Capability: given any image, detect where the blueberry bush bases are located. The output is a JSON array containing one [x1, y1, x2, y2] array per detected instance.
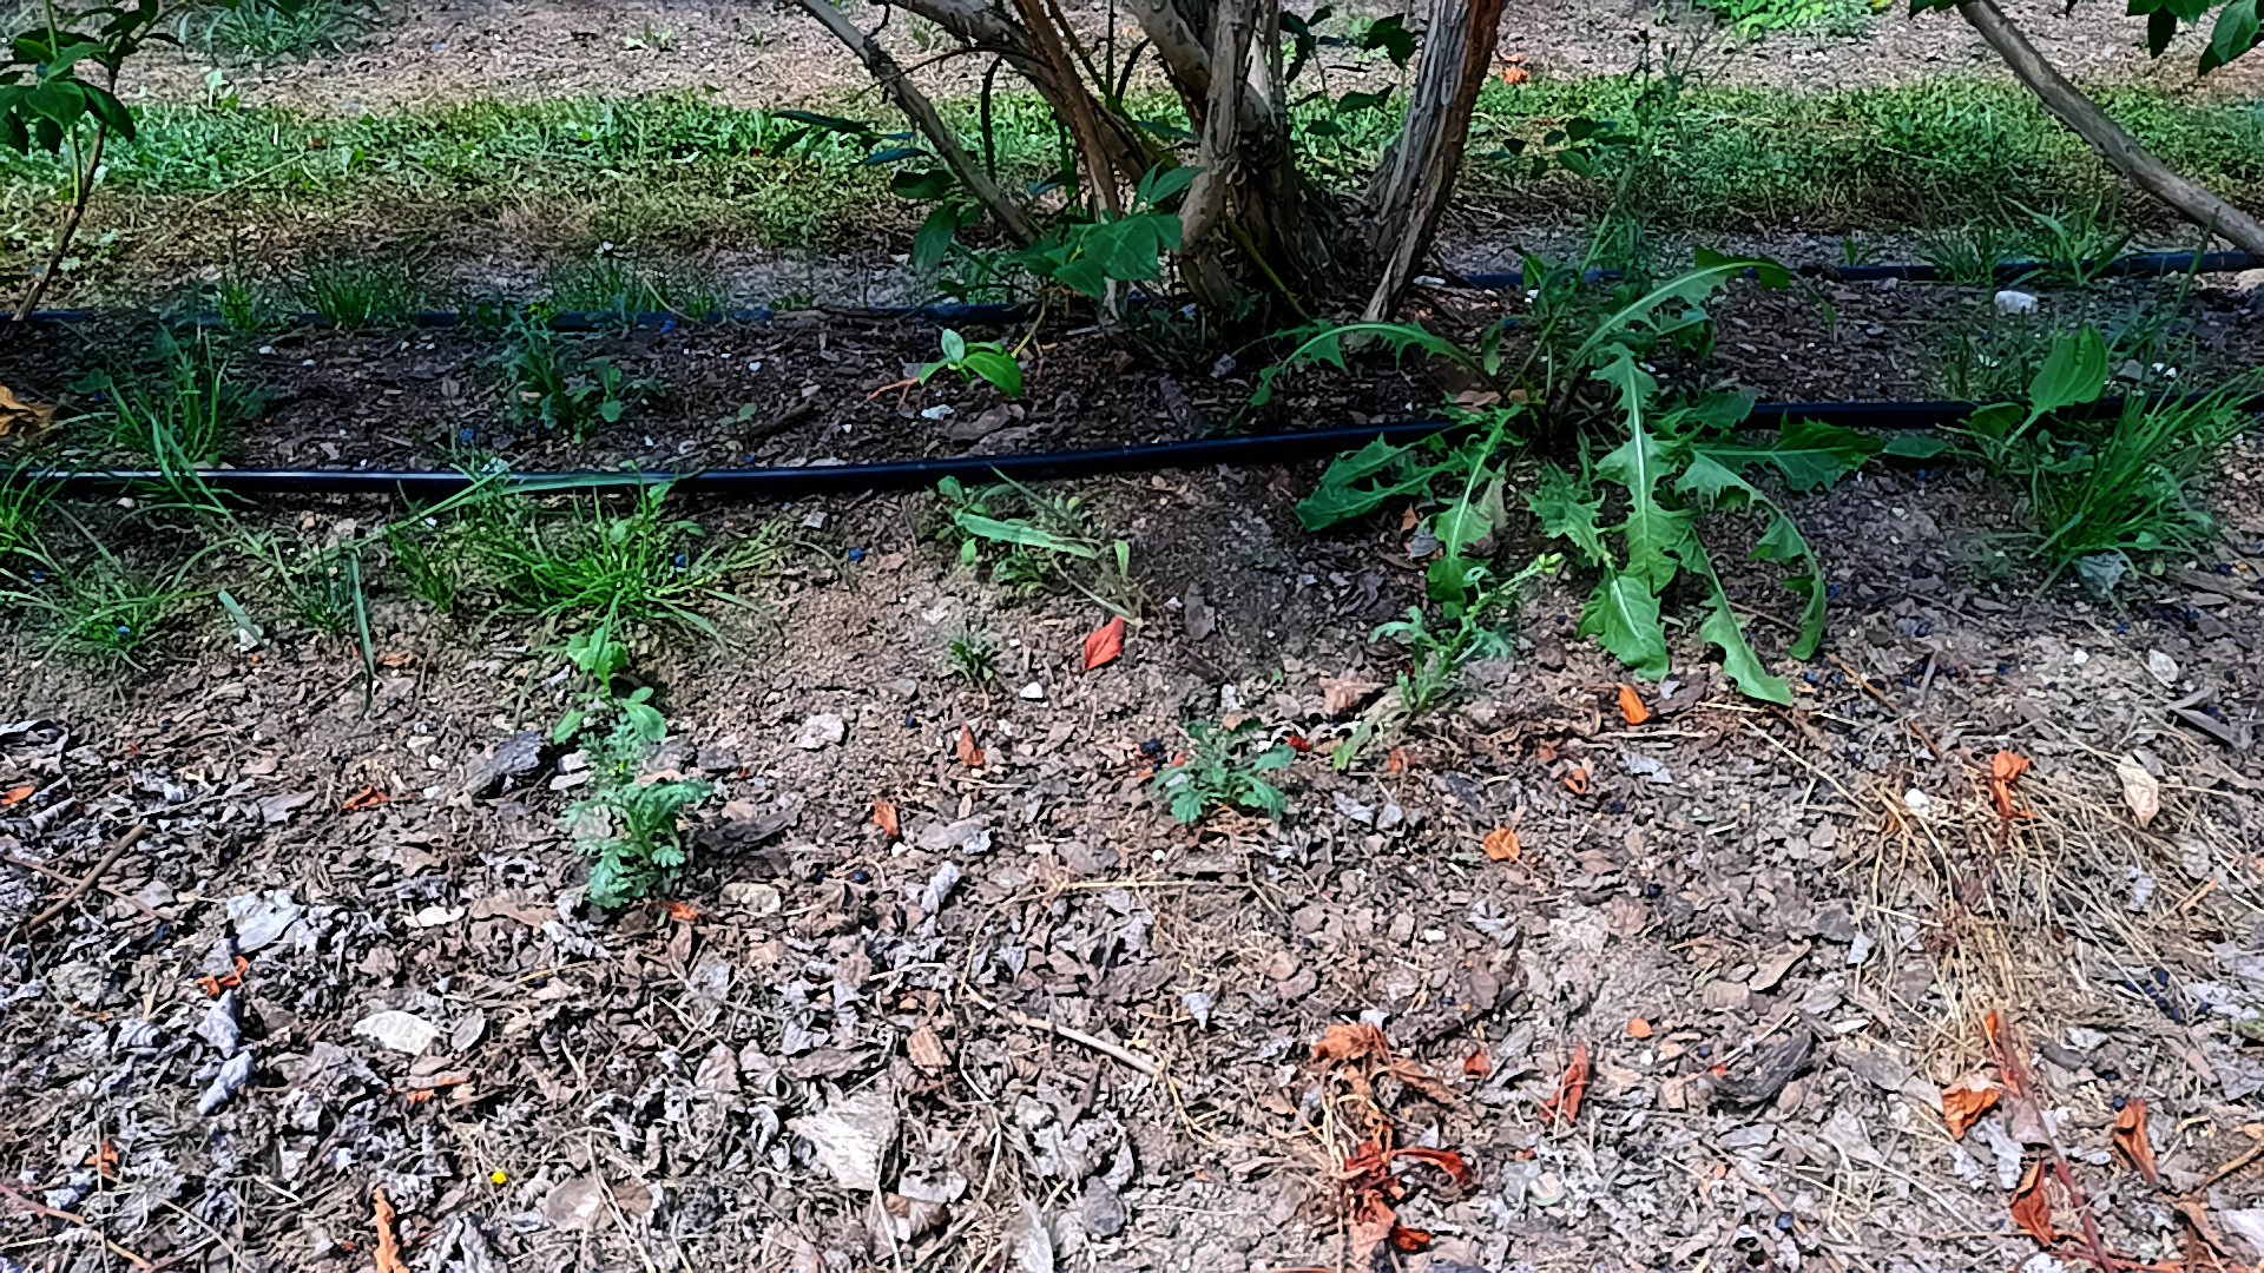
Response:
[[2031, 87, 2264, 324], [939, 35, 1518, 455]]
